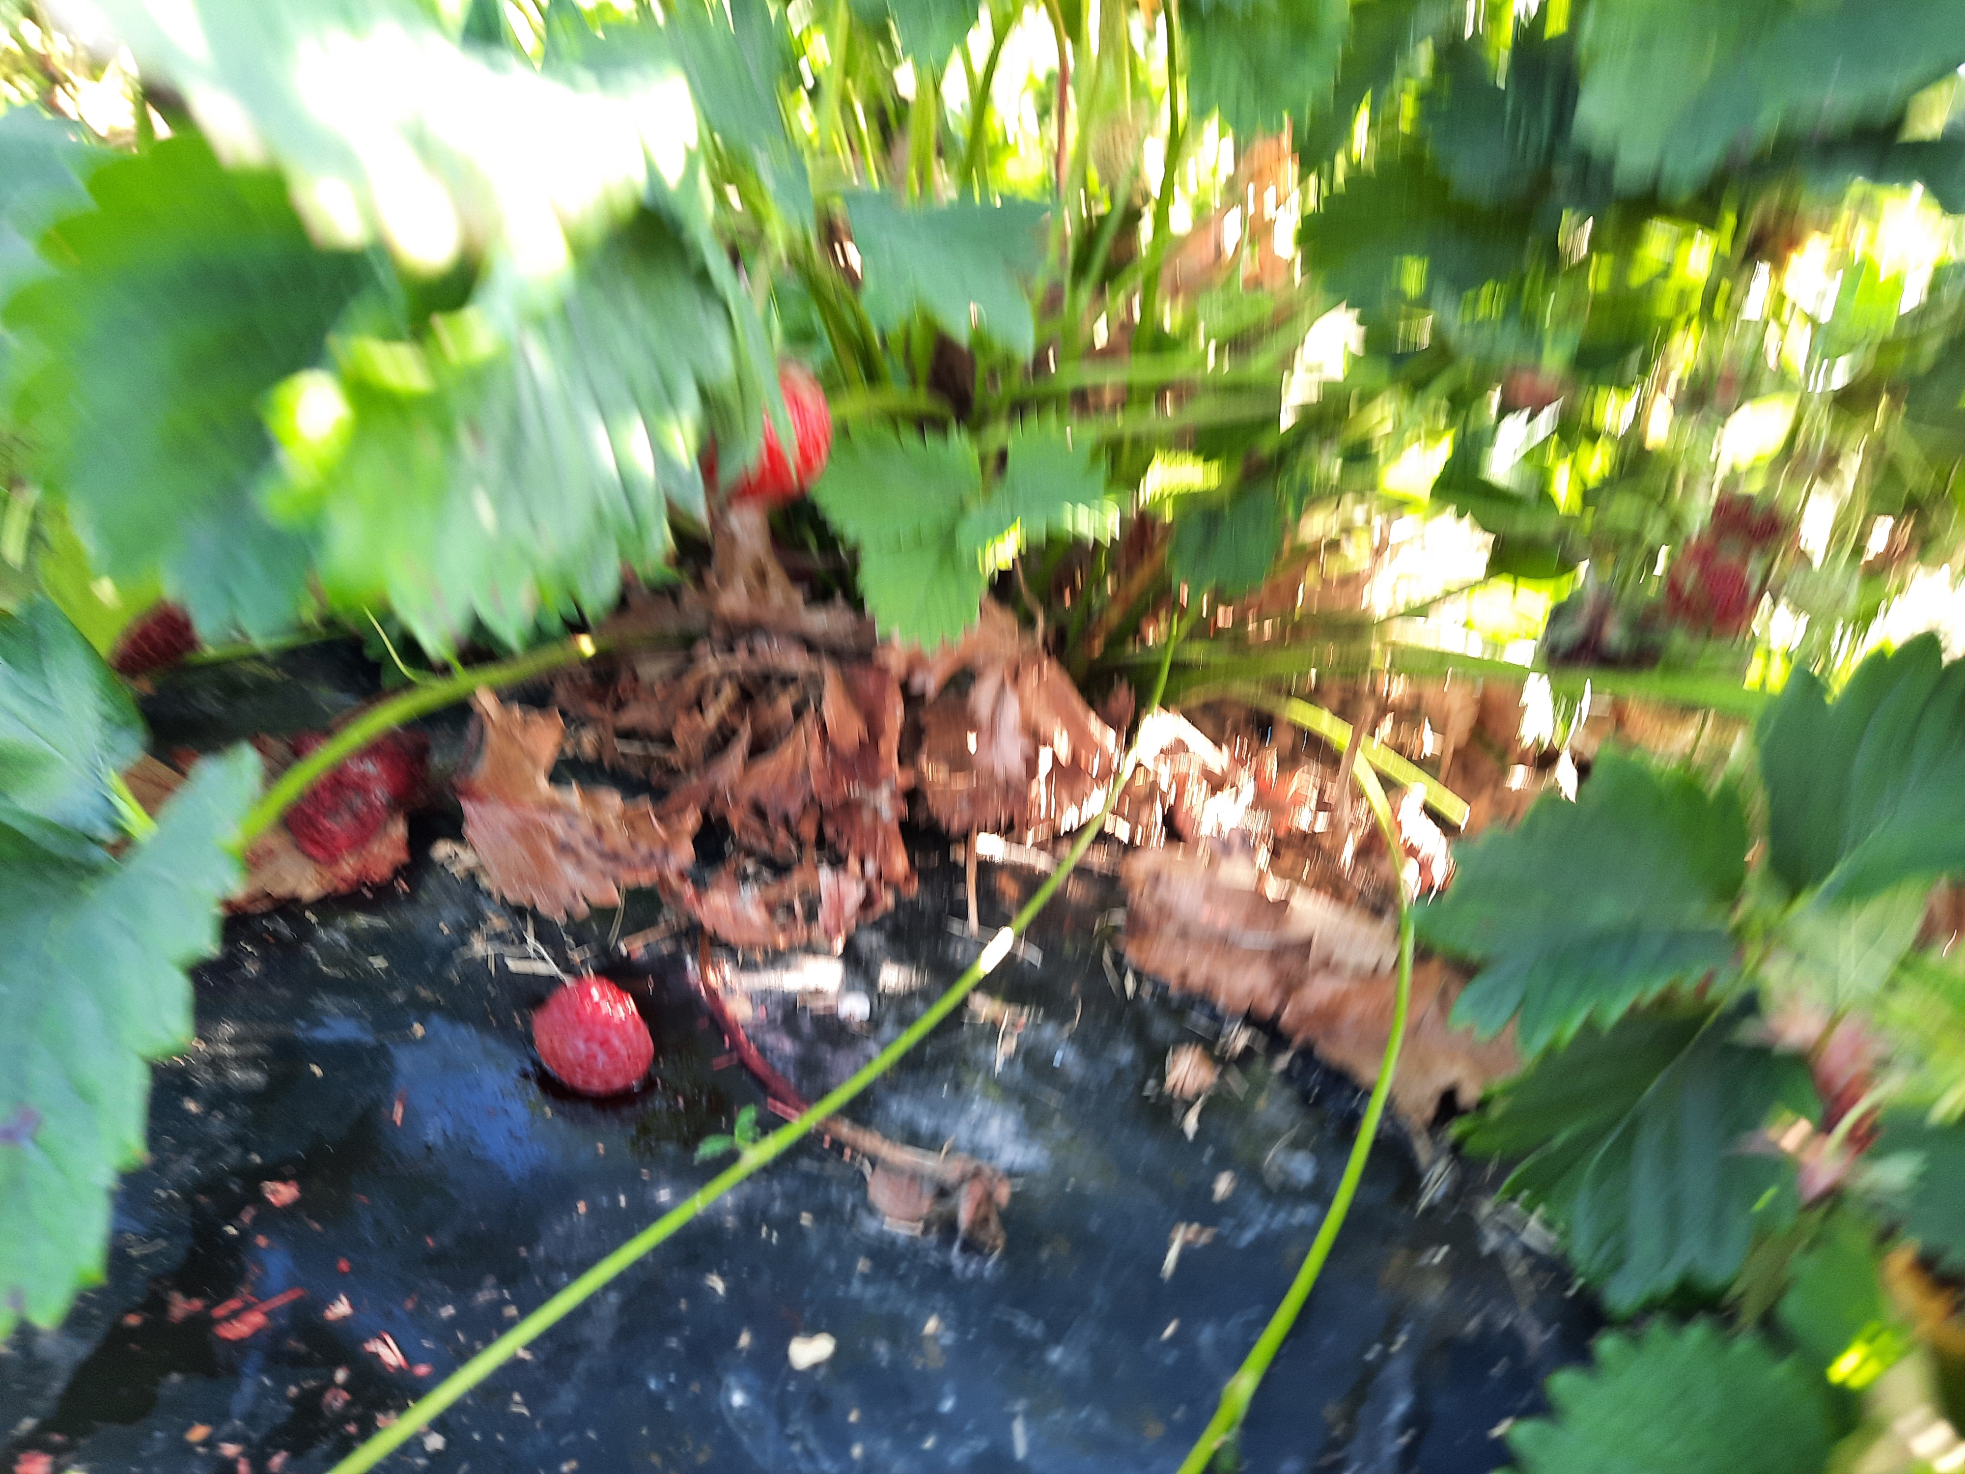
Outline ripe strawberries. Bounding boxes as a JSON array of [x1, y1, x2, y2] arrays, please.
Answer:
[[696, 380, 821, 502], [539, 945, 671, 1097], [1649, 530, 1805, 650]]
